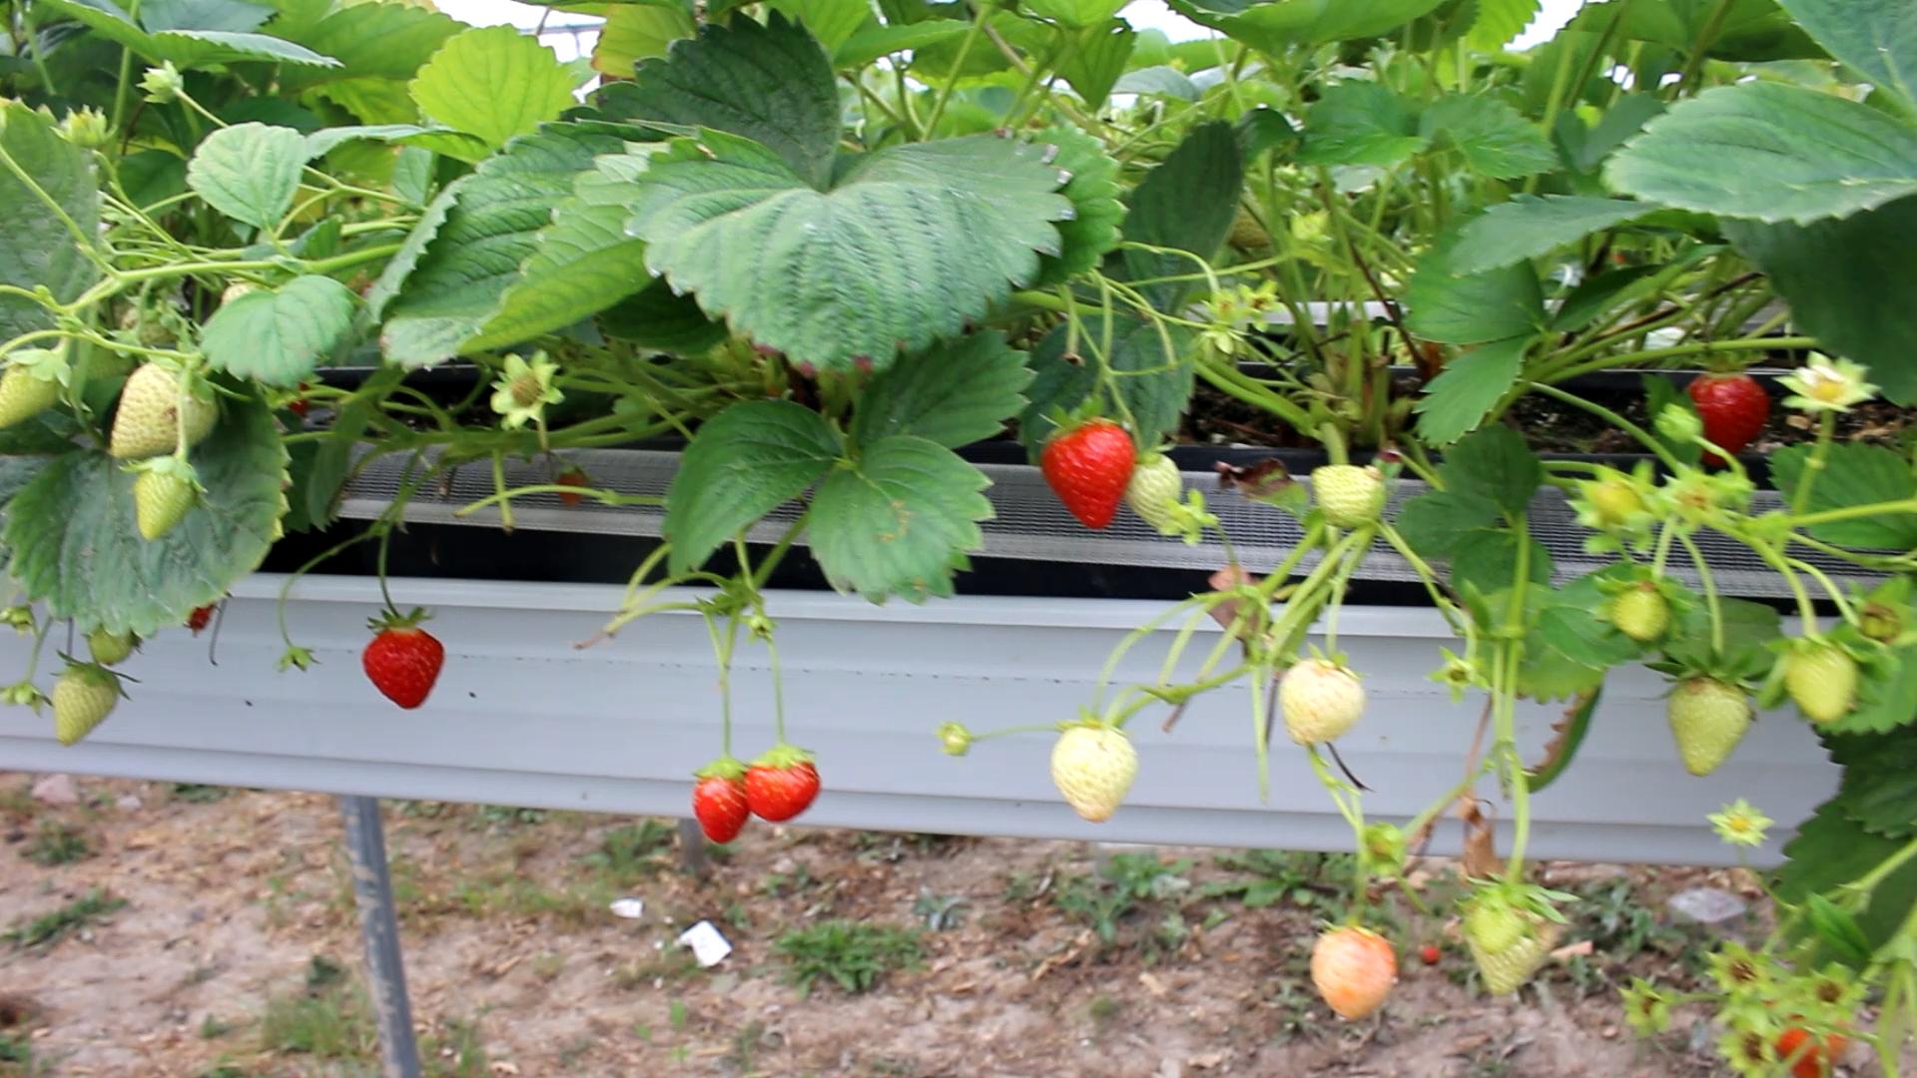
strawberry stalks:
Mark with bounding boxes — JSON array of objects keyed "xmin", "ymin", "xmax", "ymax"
[
  {"xmin": 758, "ymin": 628, "xmax": 810, "ymax": 773},
  {"xmin": 1067, "ymin": 286, "xmax": 1113, "ymax": 429},
  {"xmin": 703, "ymin": 627, "xmax": 739, "ymax": 786},
  {"xmin": 370, "ymin": 529, "xmax": 422, "ymax": 640}
]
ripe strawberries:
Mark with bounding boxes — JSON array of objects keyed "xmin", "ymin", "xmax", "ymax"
[
  {"xmin": 1695, "ymin": 348, "xmax": 1792, "ymax": 479},
  {"xmin": 739, "ymin": 742, "xmax": 843, "ymax": 828},
  {"xmin": 1038, "ymin": 396, "xmax": 1136, "ymax": 541},
  {"xmin": 665, "ymin": 763, "xmax": 749, "ymax": 855},
  {"xmin": 345, "ymin": 621, "xmax": 470, "ymax": 703}
]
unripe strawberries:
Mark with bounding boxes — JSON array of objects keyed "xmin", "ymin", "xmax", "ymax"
[
  {"xmin": 1048, "ymin": 710, "xmax": 1145, "ymax": 806},
  {"xmin": 1660, "ymin": 684, "xmax": 1756, "ymax": 774},
  {"xmin": 1435, "ymin": 903, "xmax": 1577, "ymax": 1000},
  {"xmin": 1228, "ymin": 649, "xmax": 1372, "ymax": 750},
  {"xmin": 1298, "ymin": 919, "xmax": 1418, "ymax": 1024},
  {"xmin": 1764, "ymin": 651, "xmax": 1888, "ymax": 719},
  {"xmin": 1606, "ymin": 576, "xmax": 1672, "ymax": 639},
  {"xmin": 1283, "ymin": 454, "xmax": 1407, "ymax": 545}
]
